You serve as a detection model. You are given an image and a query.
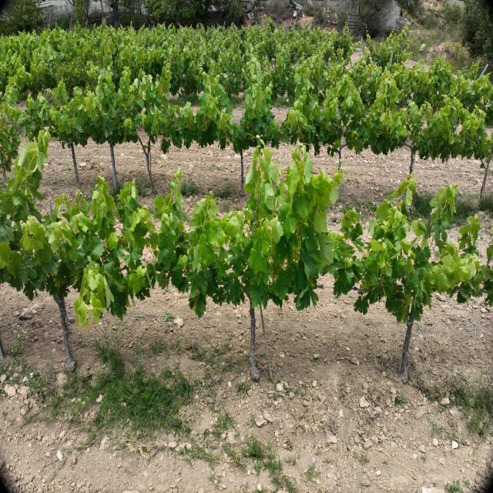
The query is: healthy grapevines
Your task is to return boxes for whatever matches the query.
[337,183,493,394]
[147,150,340,397]
[0,174,153,385]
